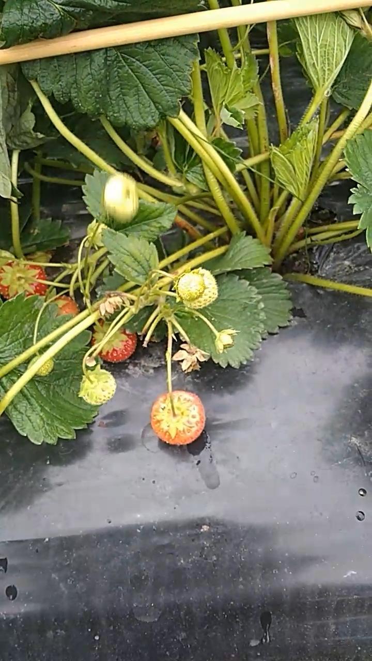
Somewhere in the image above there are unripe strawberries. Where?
[149,388,213,446]
[29,354,56,380]
[78,370,118,408]
[107,175,140,225]
[174,268,220,313]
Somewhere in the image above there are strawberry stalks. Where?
[79,351,95,390]
[14,275,76,290]
[162,325,181,419]
[25,320,43,361]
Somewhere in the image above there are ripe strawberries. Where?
[95,326,140,364]
[47,297,78,330]
[1,252,43,305]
